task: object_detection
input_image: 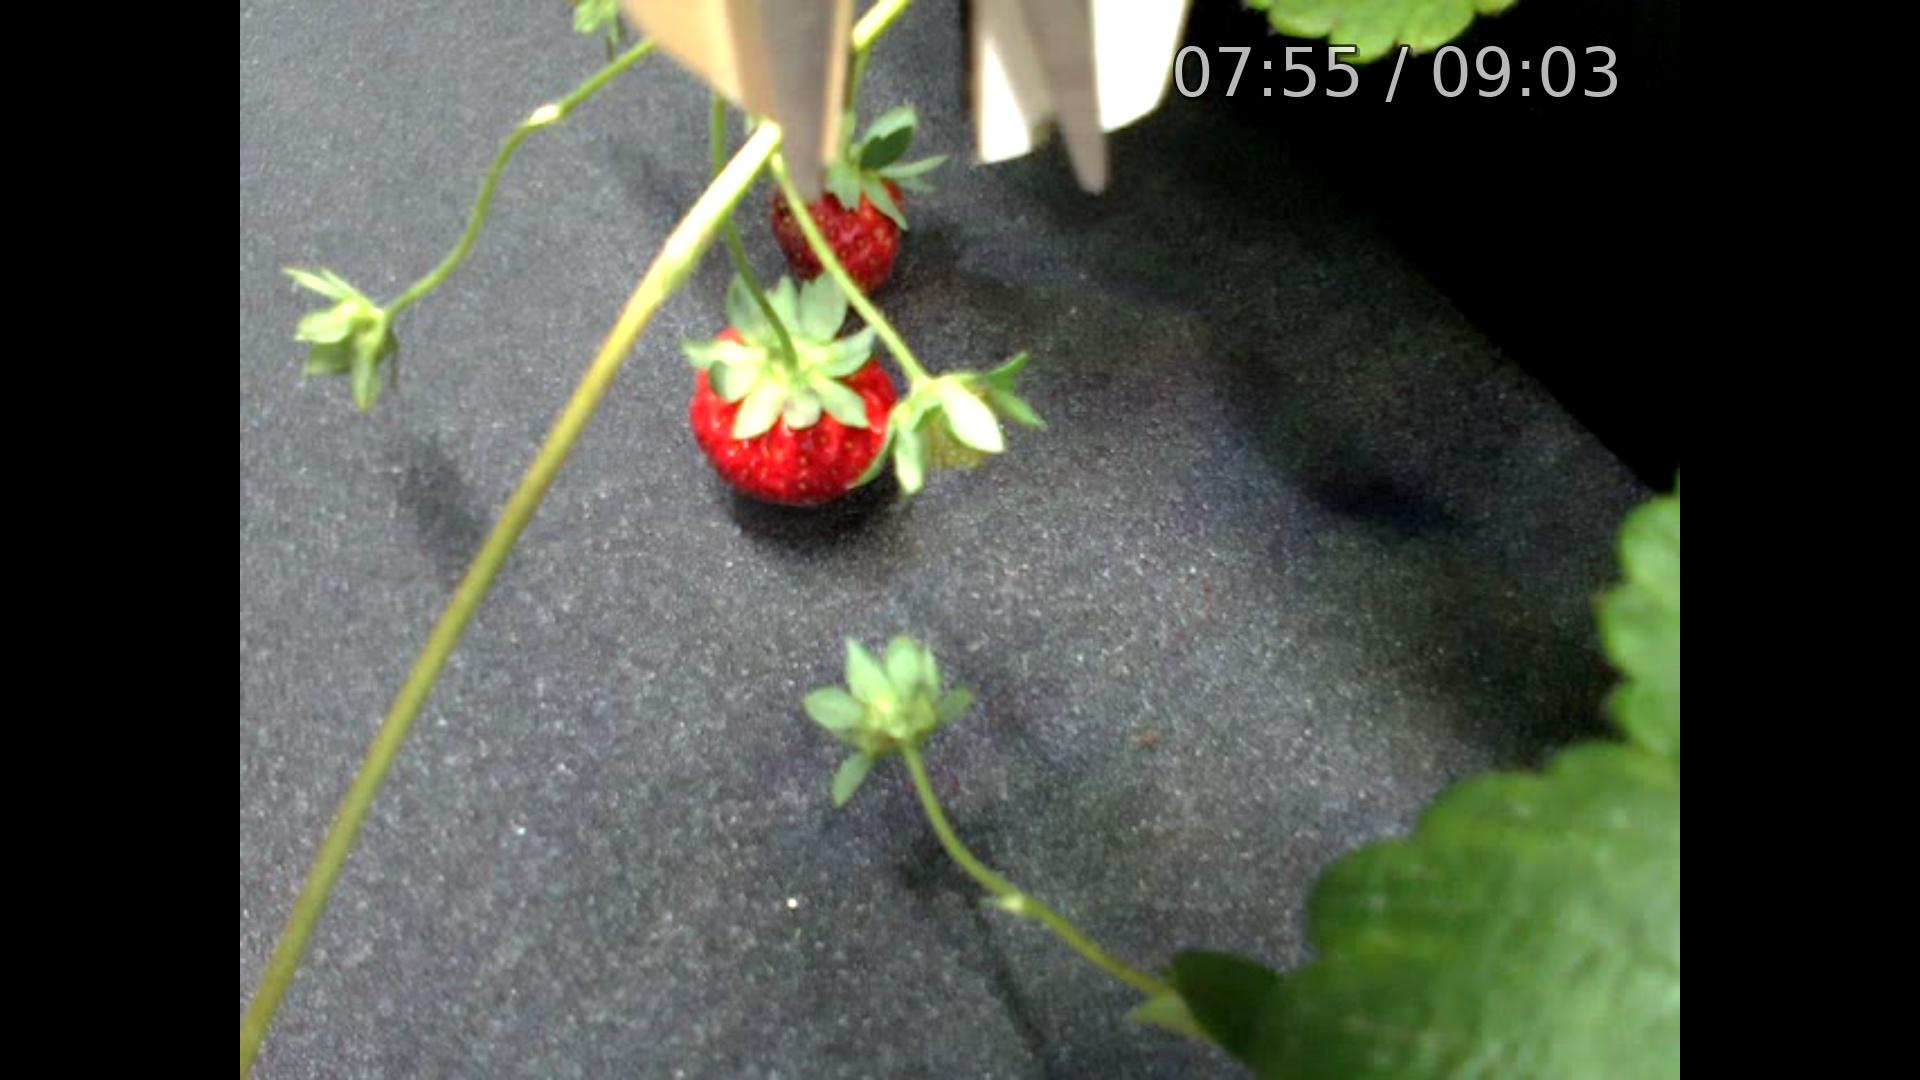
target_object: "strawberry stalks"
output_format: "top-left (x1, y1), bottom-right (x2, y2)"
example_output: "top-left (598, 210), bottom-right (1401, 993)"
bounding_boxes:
top-left (842, 690), bottom-right (843, 691)
top-left (737, 265), bottom-right (822, 394)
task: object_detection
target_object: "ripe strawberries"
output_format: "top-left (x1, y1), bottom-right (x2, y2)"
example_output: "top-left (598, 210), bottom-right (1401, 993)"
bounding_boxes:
top-left (685, 316), bottom-right (905, 514)
top-left (773, 176), bottom-right (926, 293)
top-left (818, 625), bottom-right (938, 844)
